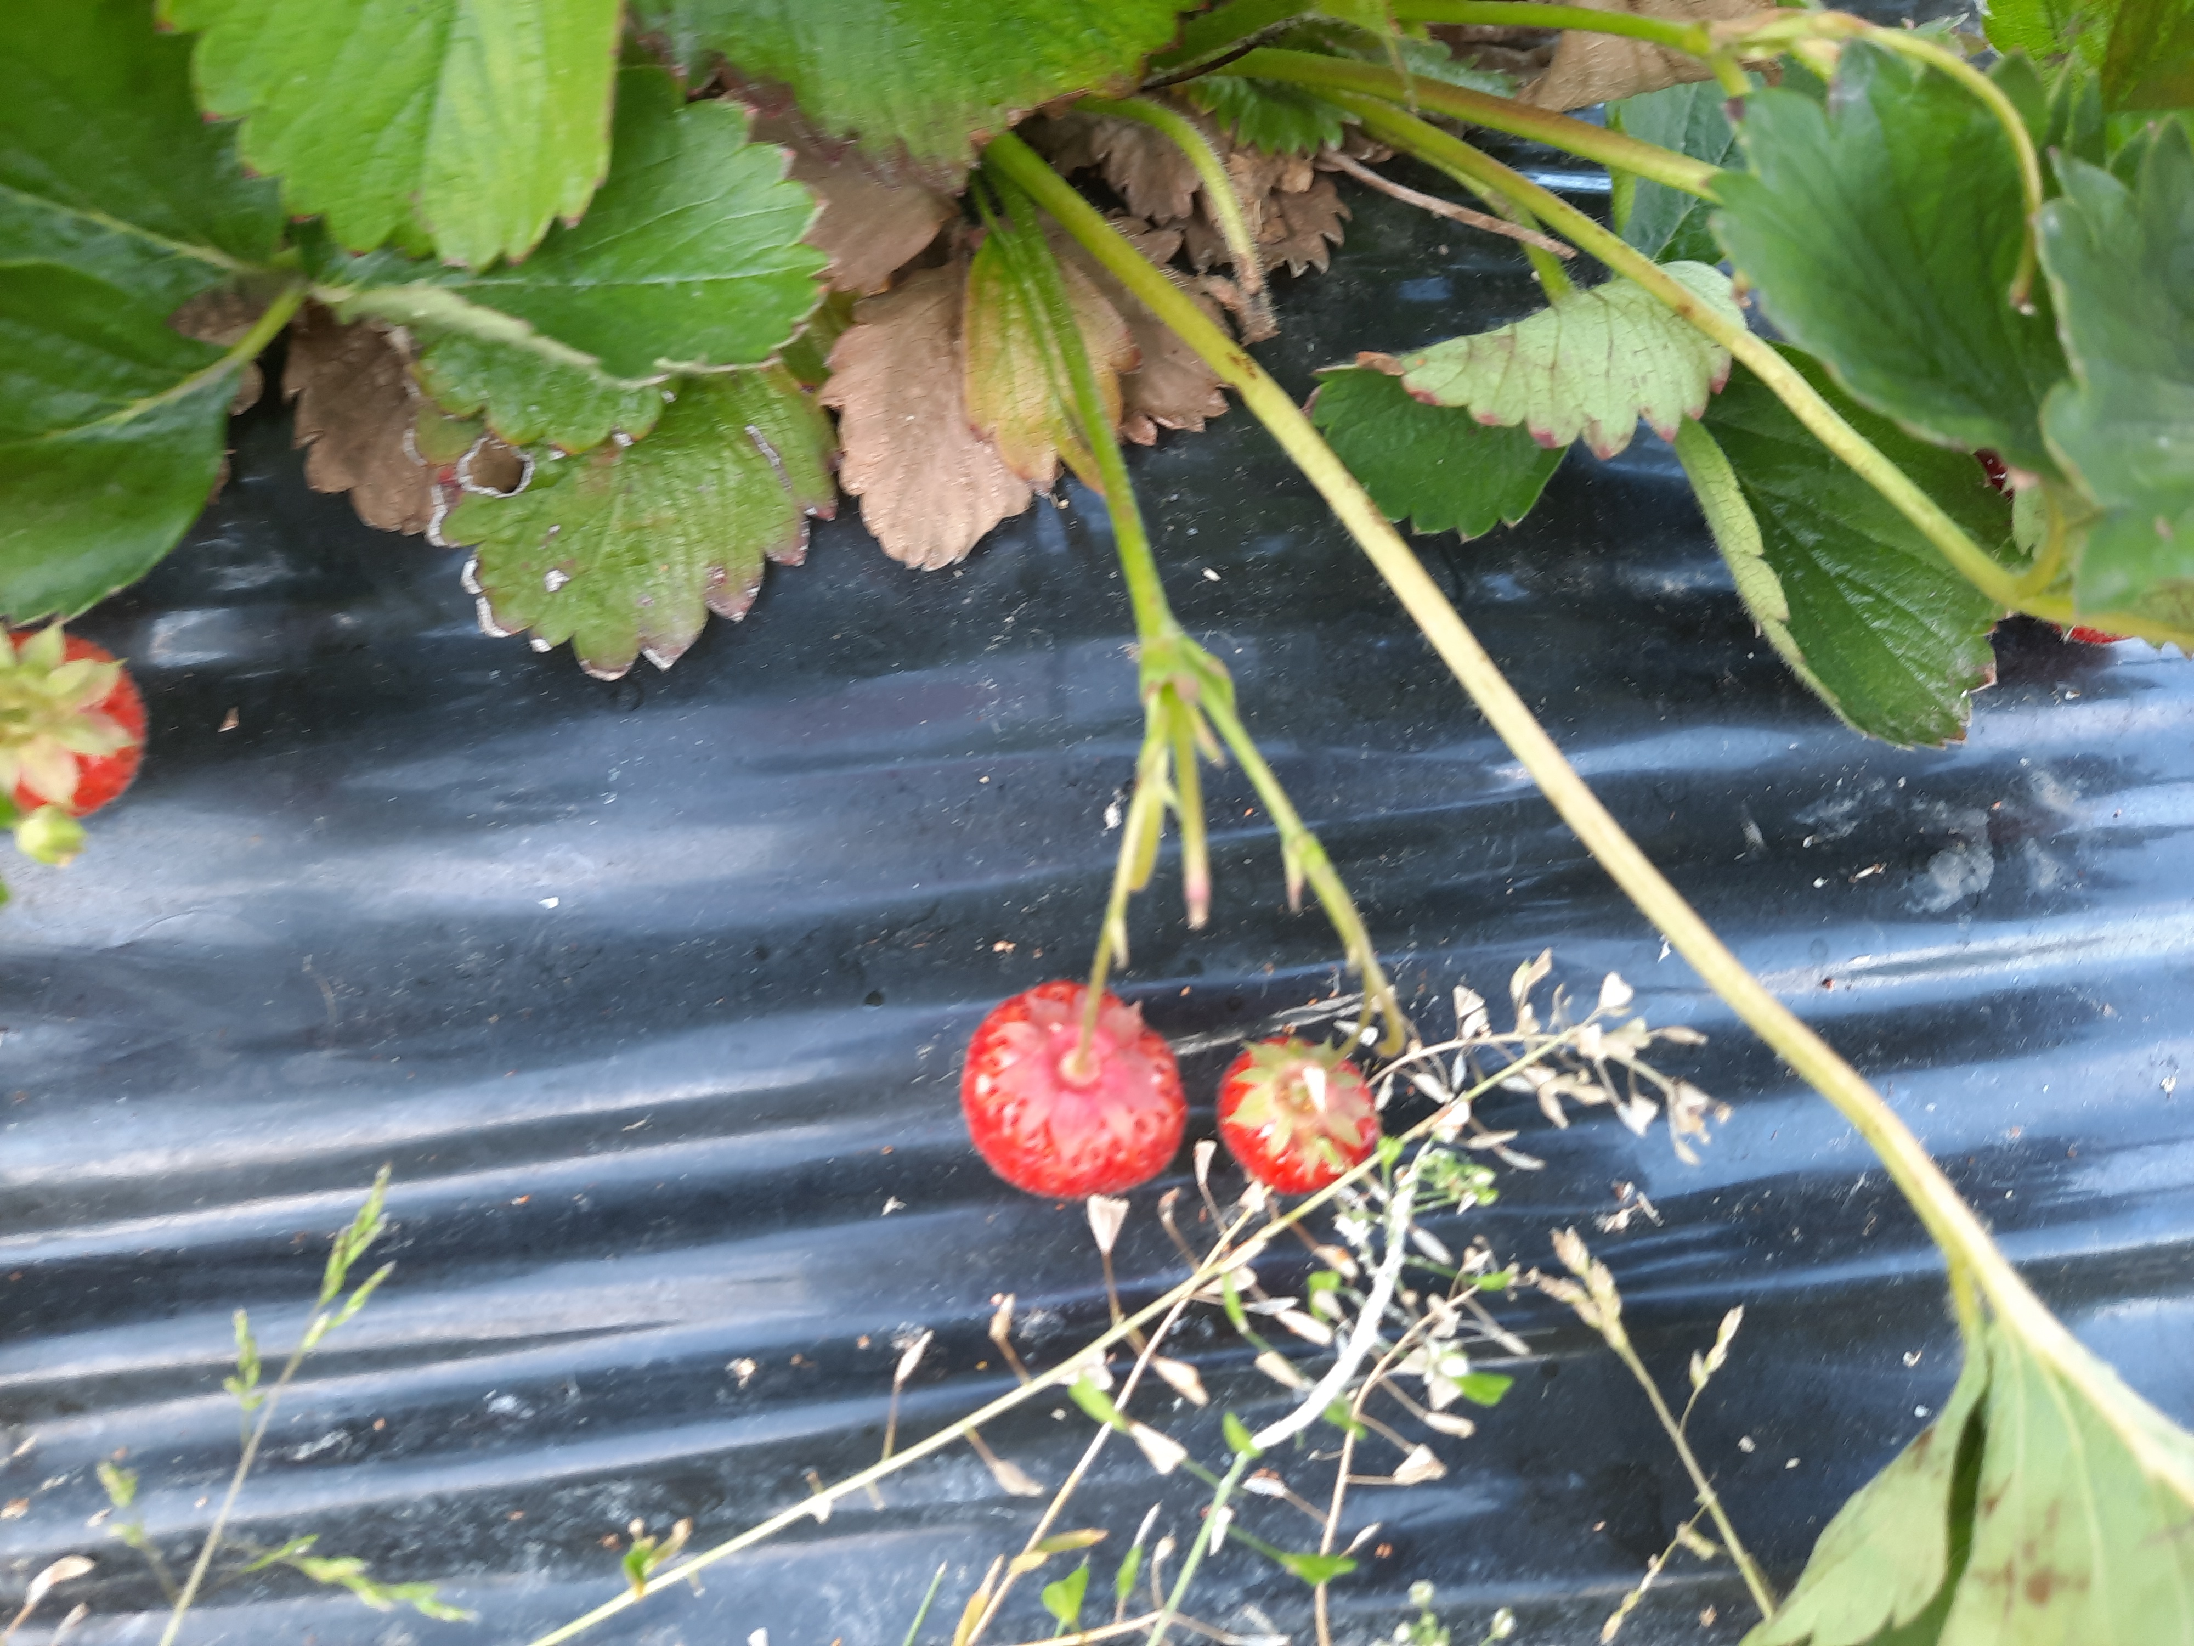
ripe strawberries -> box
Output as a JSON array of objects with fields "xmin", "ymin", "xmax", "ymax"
[
  {"xmin": 1234, "ymin": 1054, "xmax": 1370, "ymax": 1179},
  {"xmin": 960, "ymin": 967, "xmax": 1164, "ymax": 1191},
  {"xmin": 0, "ymin": 637, "xmax": 139, "ymax": 813}
]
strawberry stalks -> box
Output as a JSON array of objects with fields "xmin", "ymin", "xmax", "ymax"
[
  {"xmin": 1281, "ymin": 963, "xmax": 1387, "ymax": 1125},
  {"xmin": 1052, "ymin": 791, "xmax": 1167, "ymax": 1115}
]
